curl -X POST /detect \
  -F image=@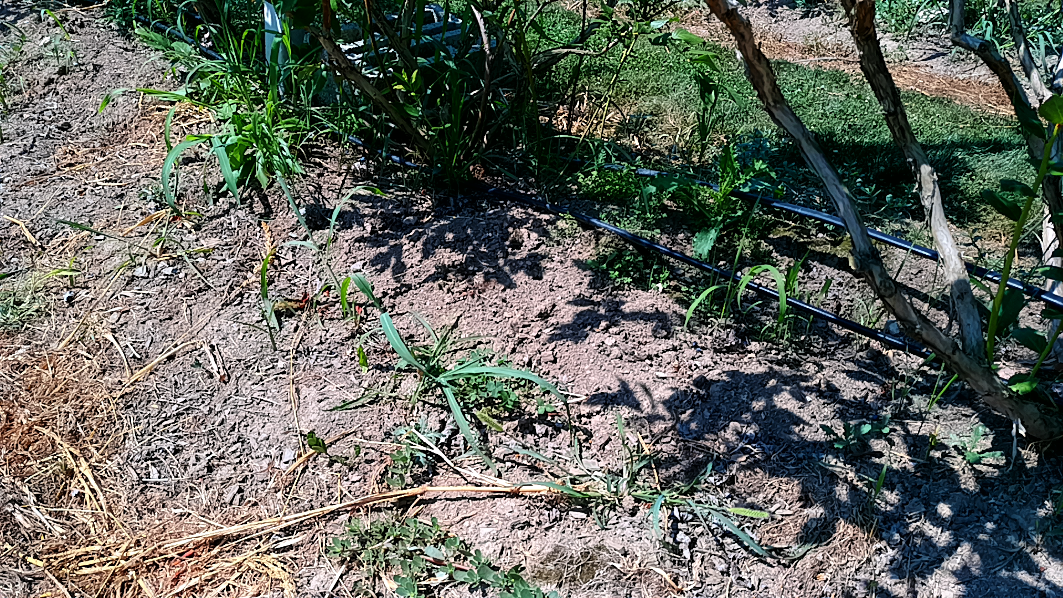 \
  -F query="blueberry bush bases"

[355,55,545,224]
[878,309,1063,521]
